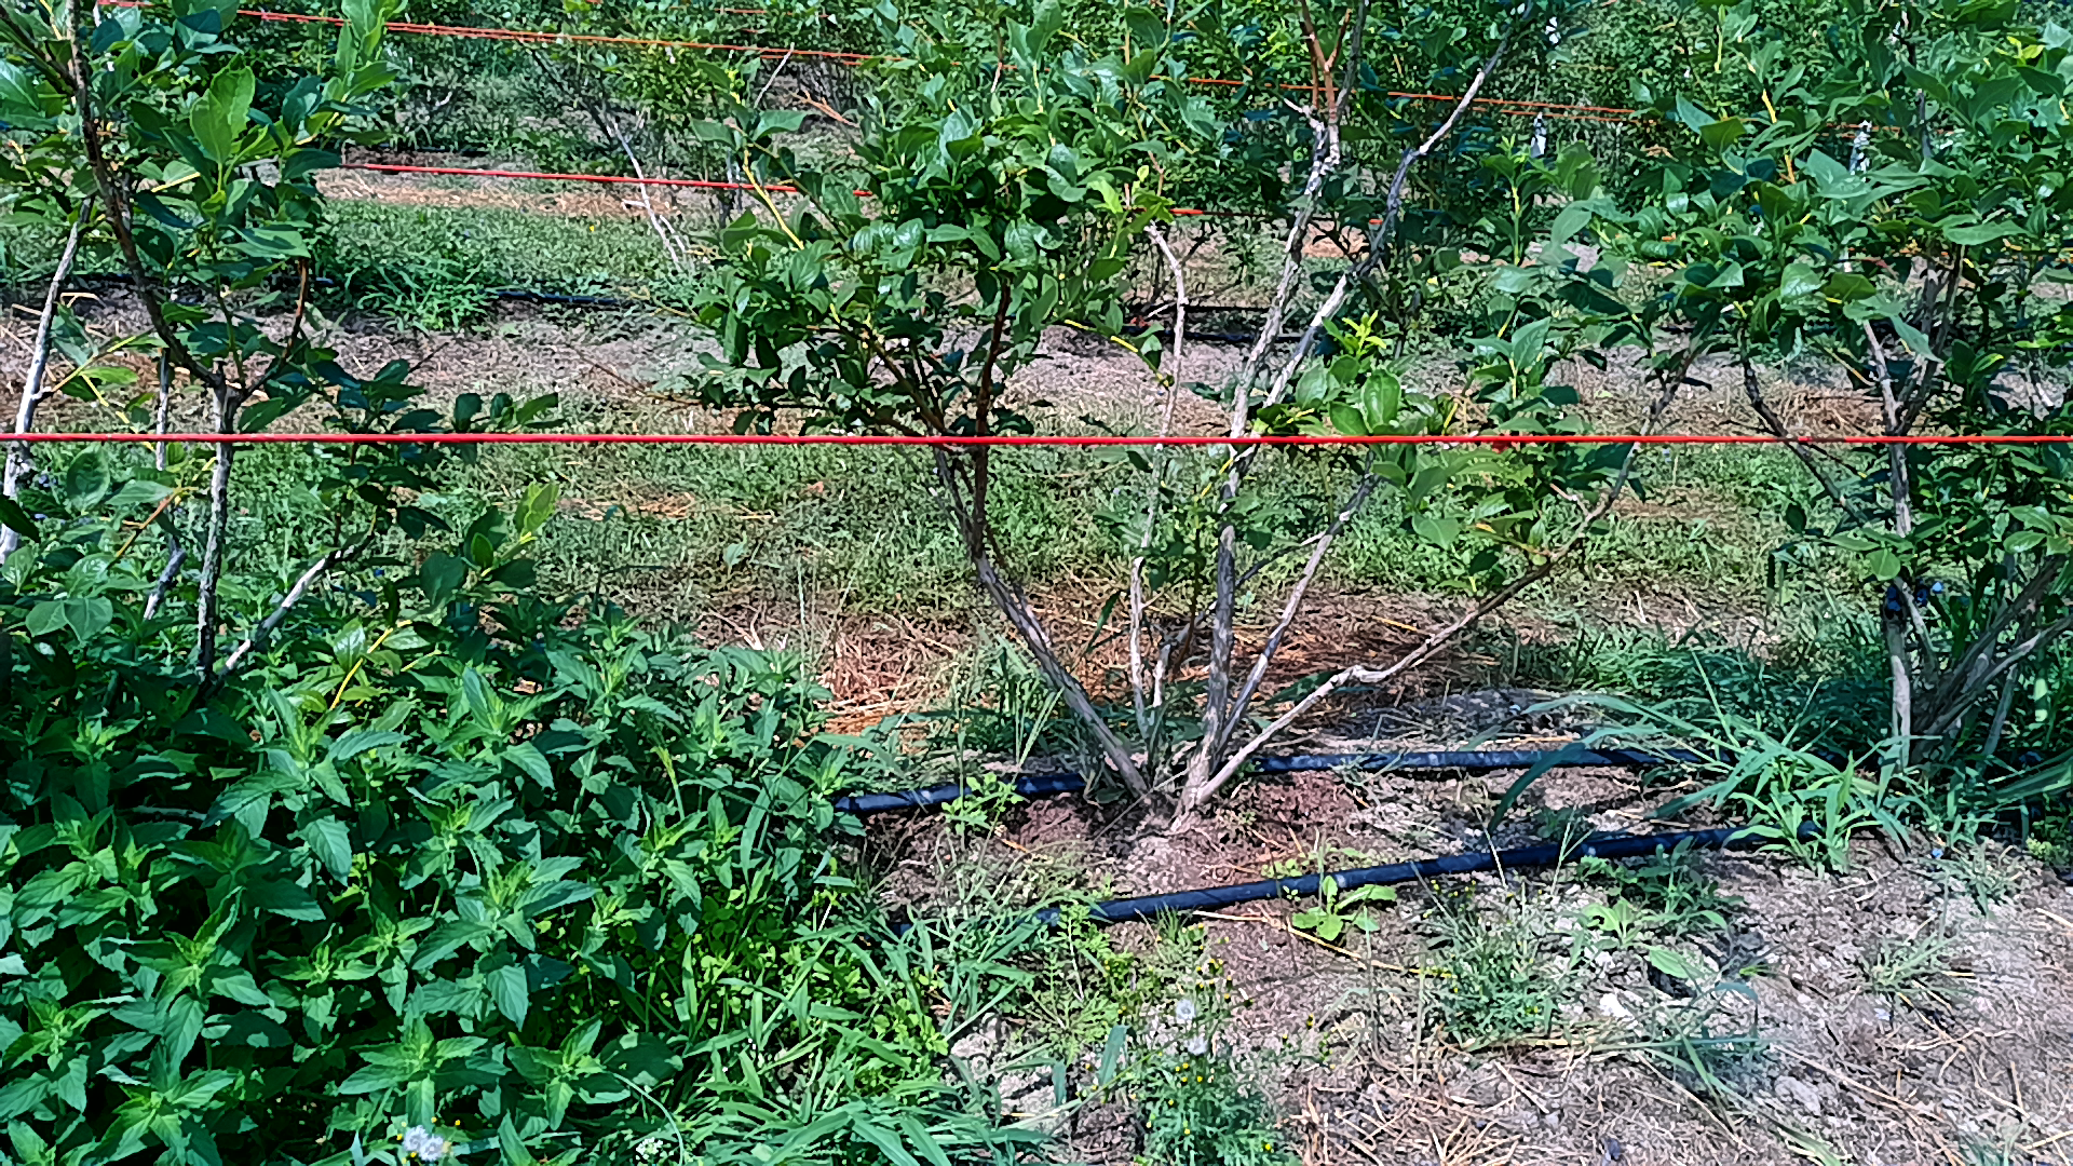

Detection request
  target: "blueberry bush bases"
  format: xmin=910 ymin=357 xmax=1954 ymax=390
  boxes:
xmin=21 ymin=512 xmax=407 ymax=984
xmin=1818 ymin=578 xmax=2073 ymax=852
xmin=965 ymin=597 xmax=1379 ymax=903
